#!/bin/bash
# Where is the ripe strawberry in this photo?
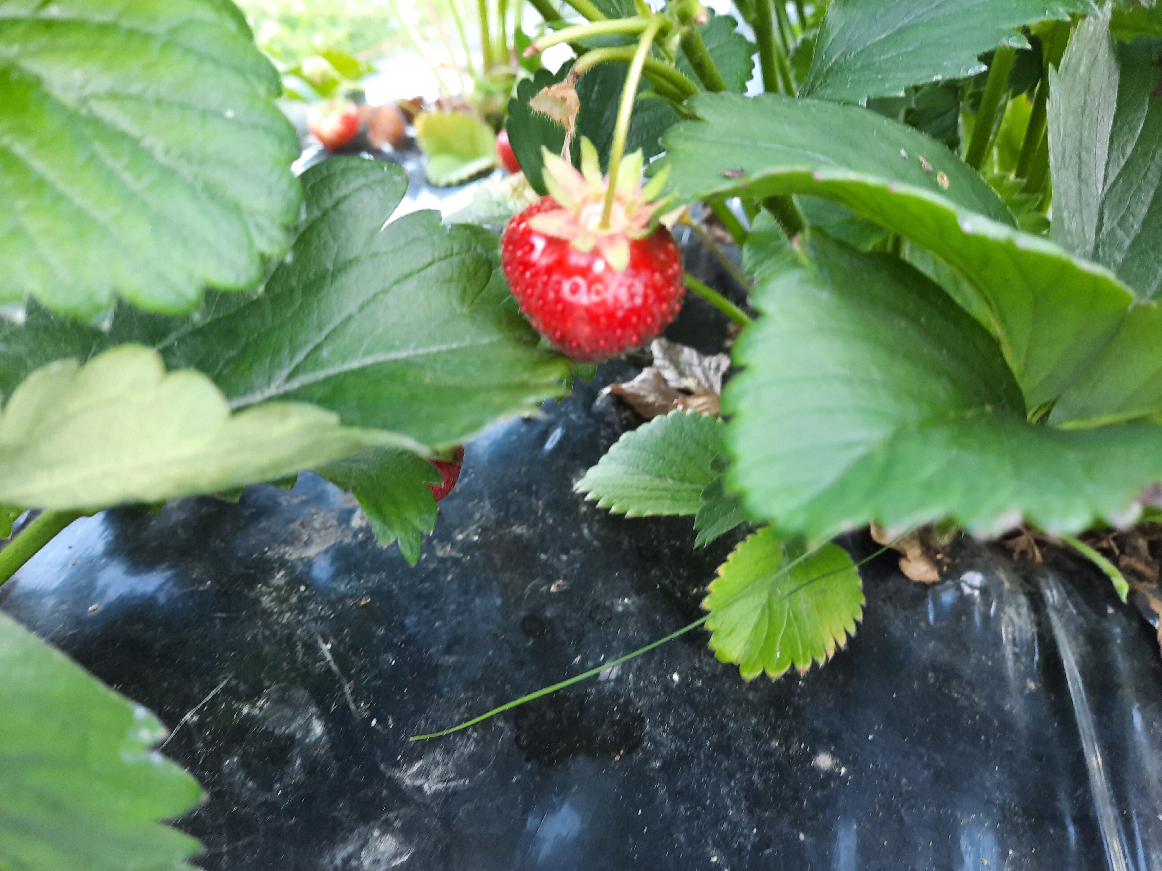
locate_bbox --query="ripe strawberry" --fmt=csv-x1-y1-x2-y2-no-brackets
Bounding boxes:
507,198,697,353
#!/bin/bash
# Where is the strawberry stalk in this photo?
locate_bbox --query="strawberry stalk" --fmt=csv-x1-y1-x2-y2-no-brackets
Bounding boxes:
579,9,679,263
